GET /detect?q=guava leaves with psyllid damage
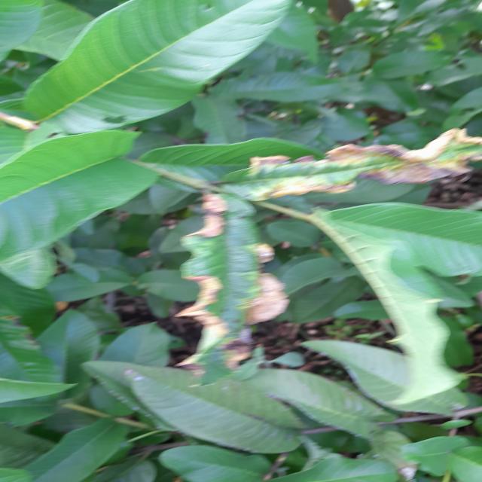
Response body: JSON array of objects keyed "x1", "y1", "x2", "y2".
[
  {"x1": 191, "y1": 127, "x2": 482, "y2": 212},
  {"x1": 178, "y1": 186, "x2": 302, "y2": 389}
]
